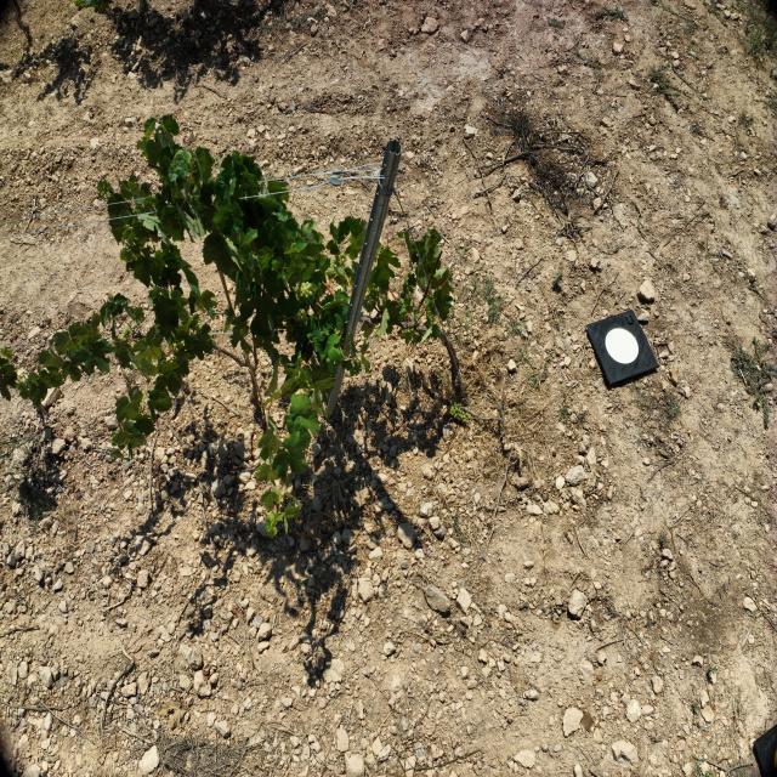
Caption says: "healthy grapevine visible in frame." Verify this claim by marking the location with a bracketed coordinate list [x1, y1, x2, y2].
[21, 107, 461, 554]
